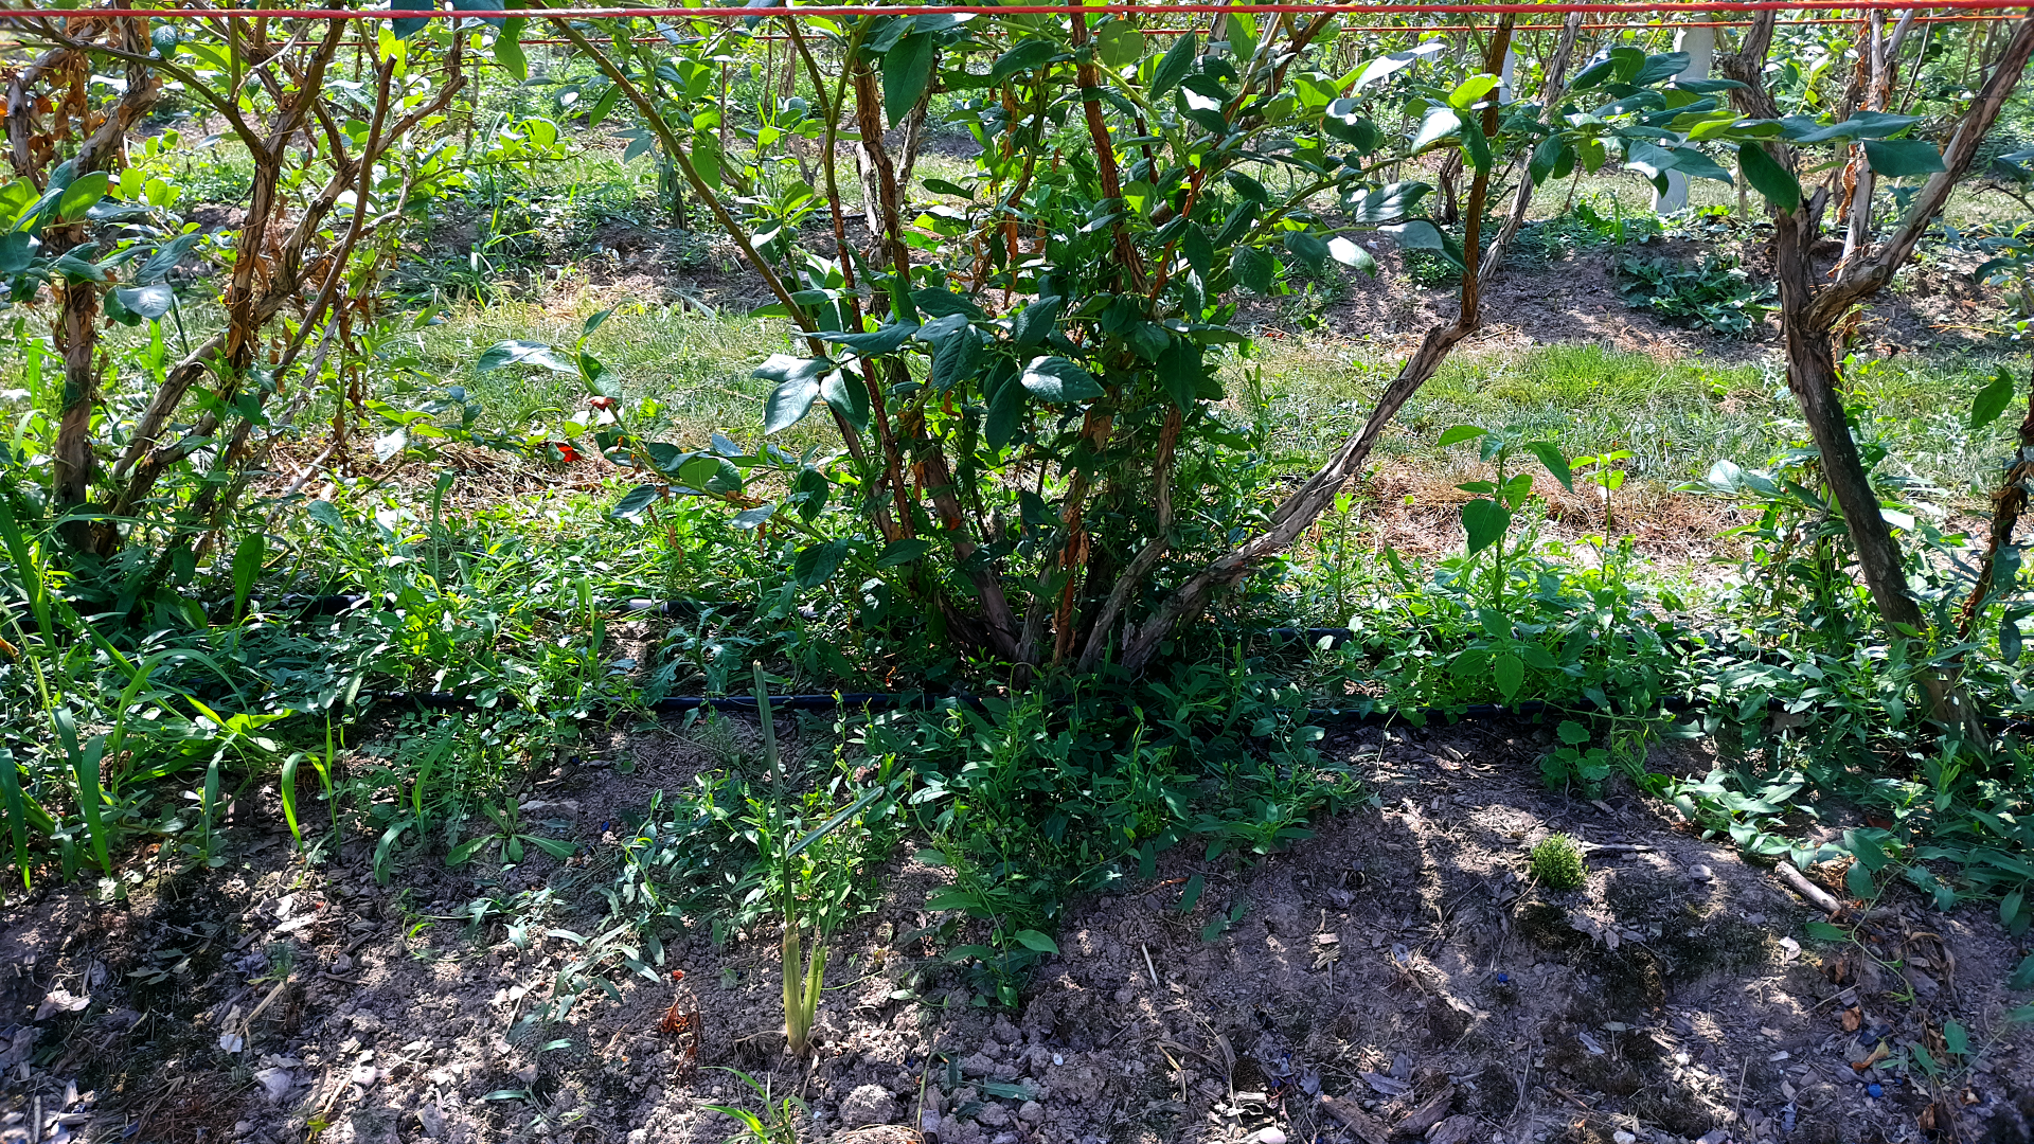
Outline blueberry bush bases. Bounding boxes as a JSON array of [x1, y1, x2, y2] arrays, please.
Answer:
[[828, 434, 1341, 816], [2, 372, 334, 711], [1767, 423, 2034, 874]]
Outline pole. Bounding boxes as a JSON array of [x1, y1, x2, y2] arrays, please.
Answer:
[[1604, 5, 1718, 258]]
